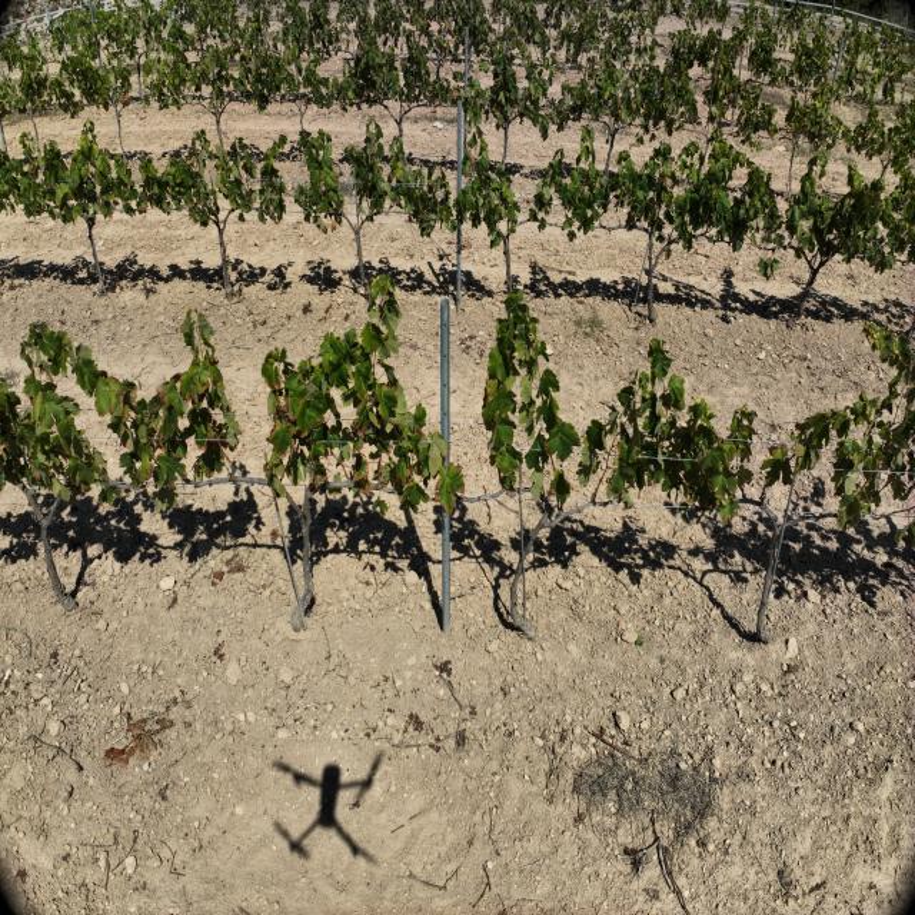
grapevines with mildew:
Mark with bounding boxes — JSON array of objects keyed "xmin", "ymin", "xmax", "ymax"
[
  {"xmin": 663, "ymin": 375, "xmax": 915, "ymax": 658},
  {"xmin": 140, "ymin": 260, "xmax": 413, "ymax": 639},
  {"xmin": 0, "ymin": 303, "xmax": 162, "ymax": 626},
  {"xmin": 405, "ymin": 285, "xmax": 673, "ymax": 655}
]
